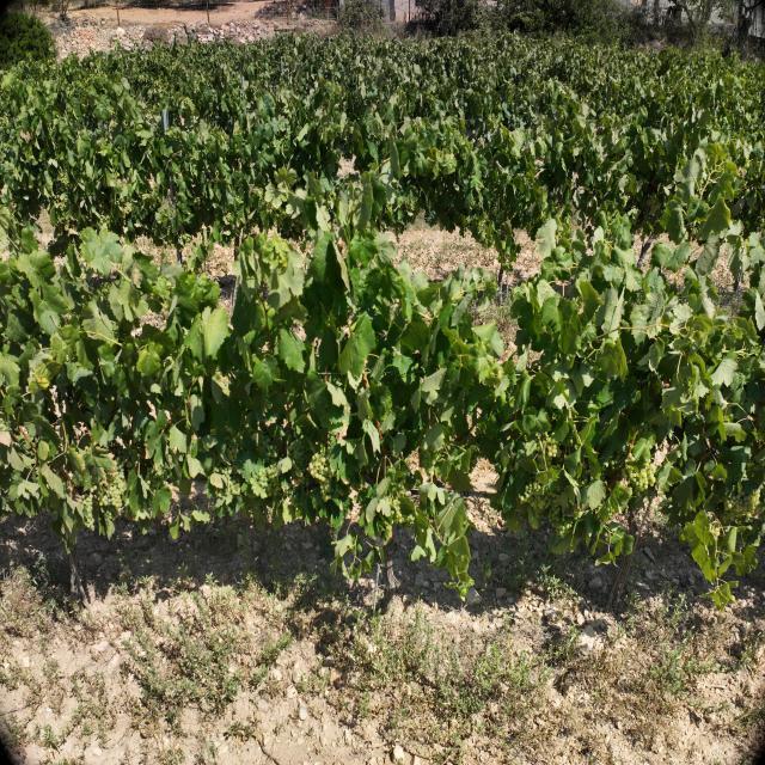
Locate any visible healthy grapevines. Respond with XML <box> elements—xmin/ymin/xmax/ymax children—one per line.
<box><xmin>0</xmin><ymin>240</ymin><xmax>243</xmax><ymax>636</ymax></box>
<box><xmin>502</xmin><ymin>245</ymin><xmax>765</xmax><ymax>636</ymax></box>
<box><xmin>237</xmin><ymin>227</ymin><xmax>518</xmax><ymax>646</ymax></box>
